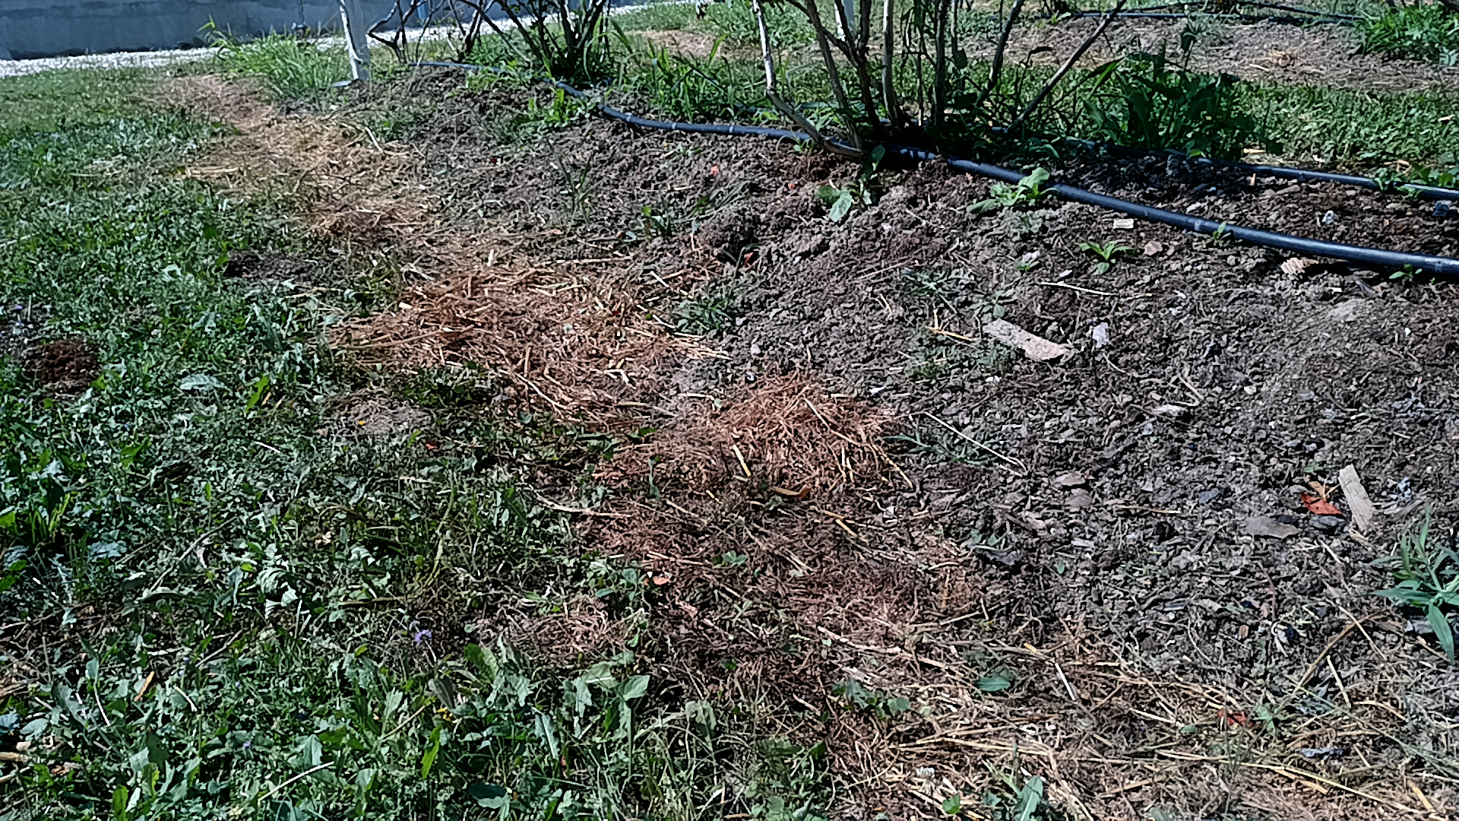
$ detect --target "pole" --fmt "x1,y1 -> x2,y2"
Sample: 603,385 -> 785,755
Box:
343,14 -> 377,83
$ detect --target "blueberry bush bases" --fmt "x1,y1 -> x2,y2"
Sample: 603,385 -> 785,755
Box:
374,18 -> 489,69
793,57 -> 1055,198
495,17 -> 626,113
